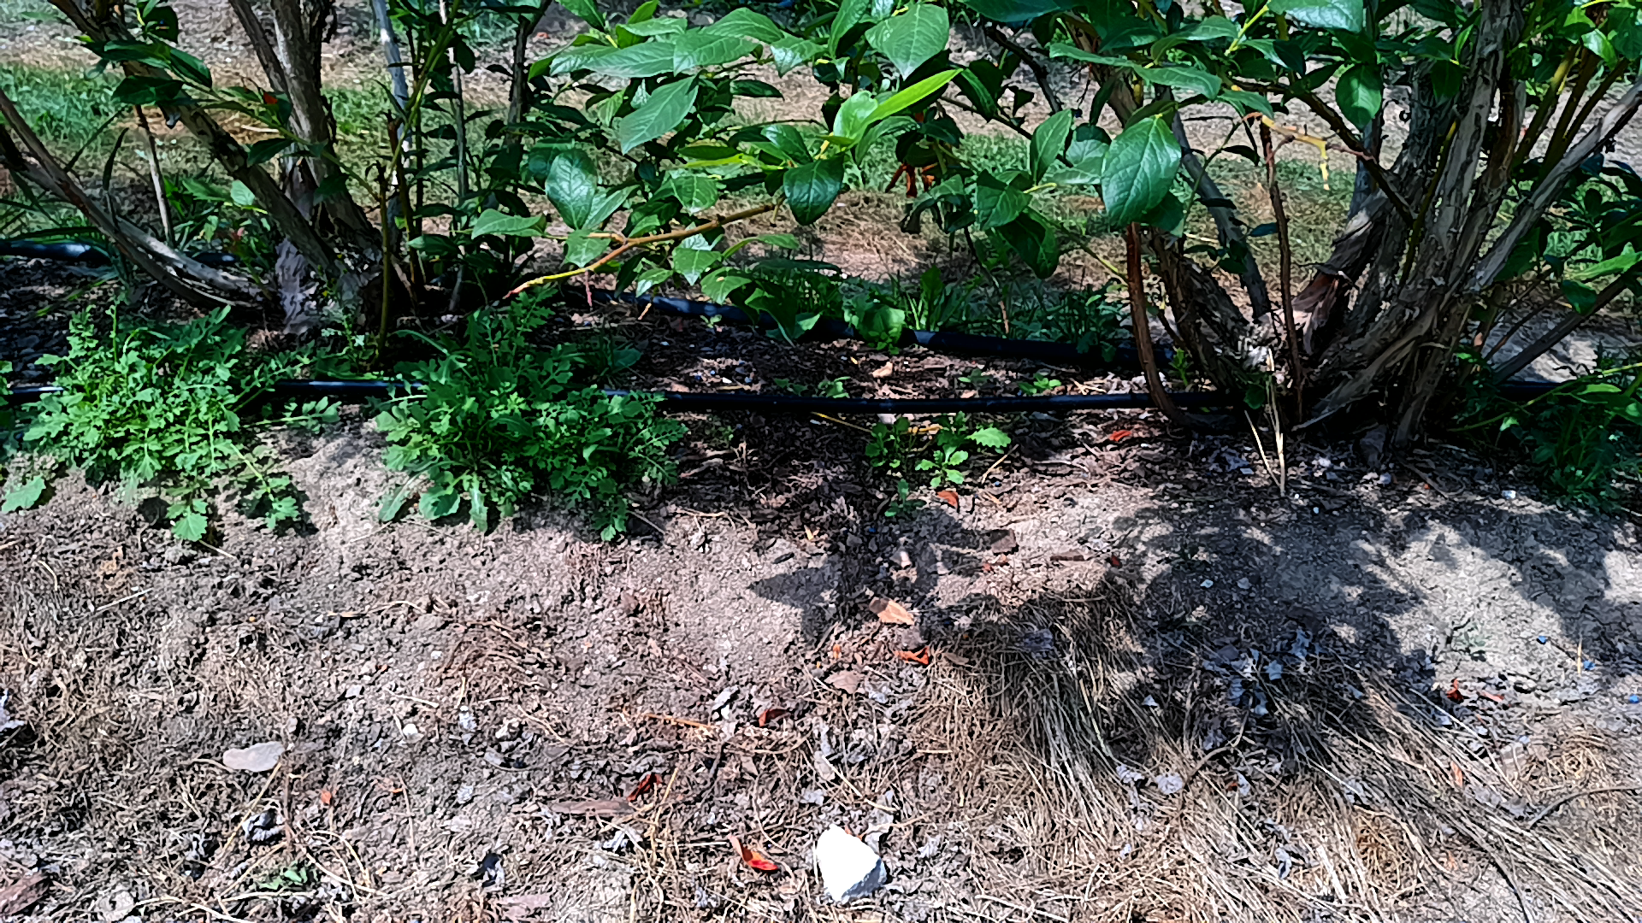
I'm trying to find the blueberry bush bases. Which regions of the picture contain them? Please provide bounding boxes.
[1101,203,1595,510]
[261,200,596,424]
